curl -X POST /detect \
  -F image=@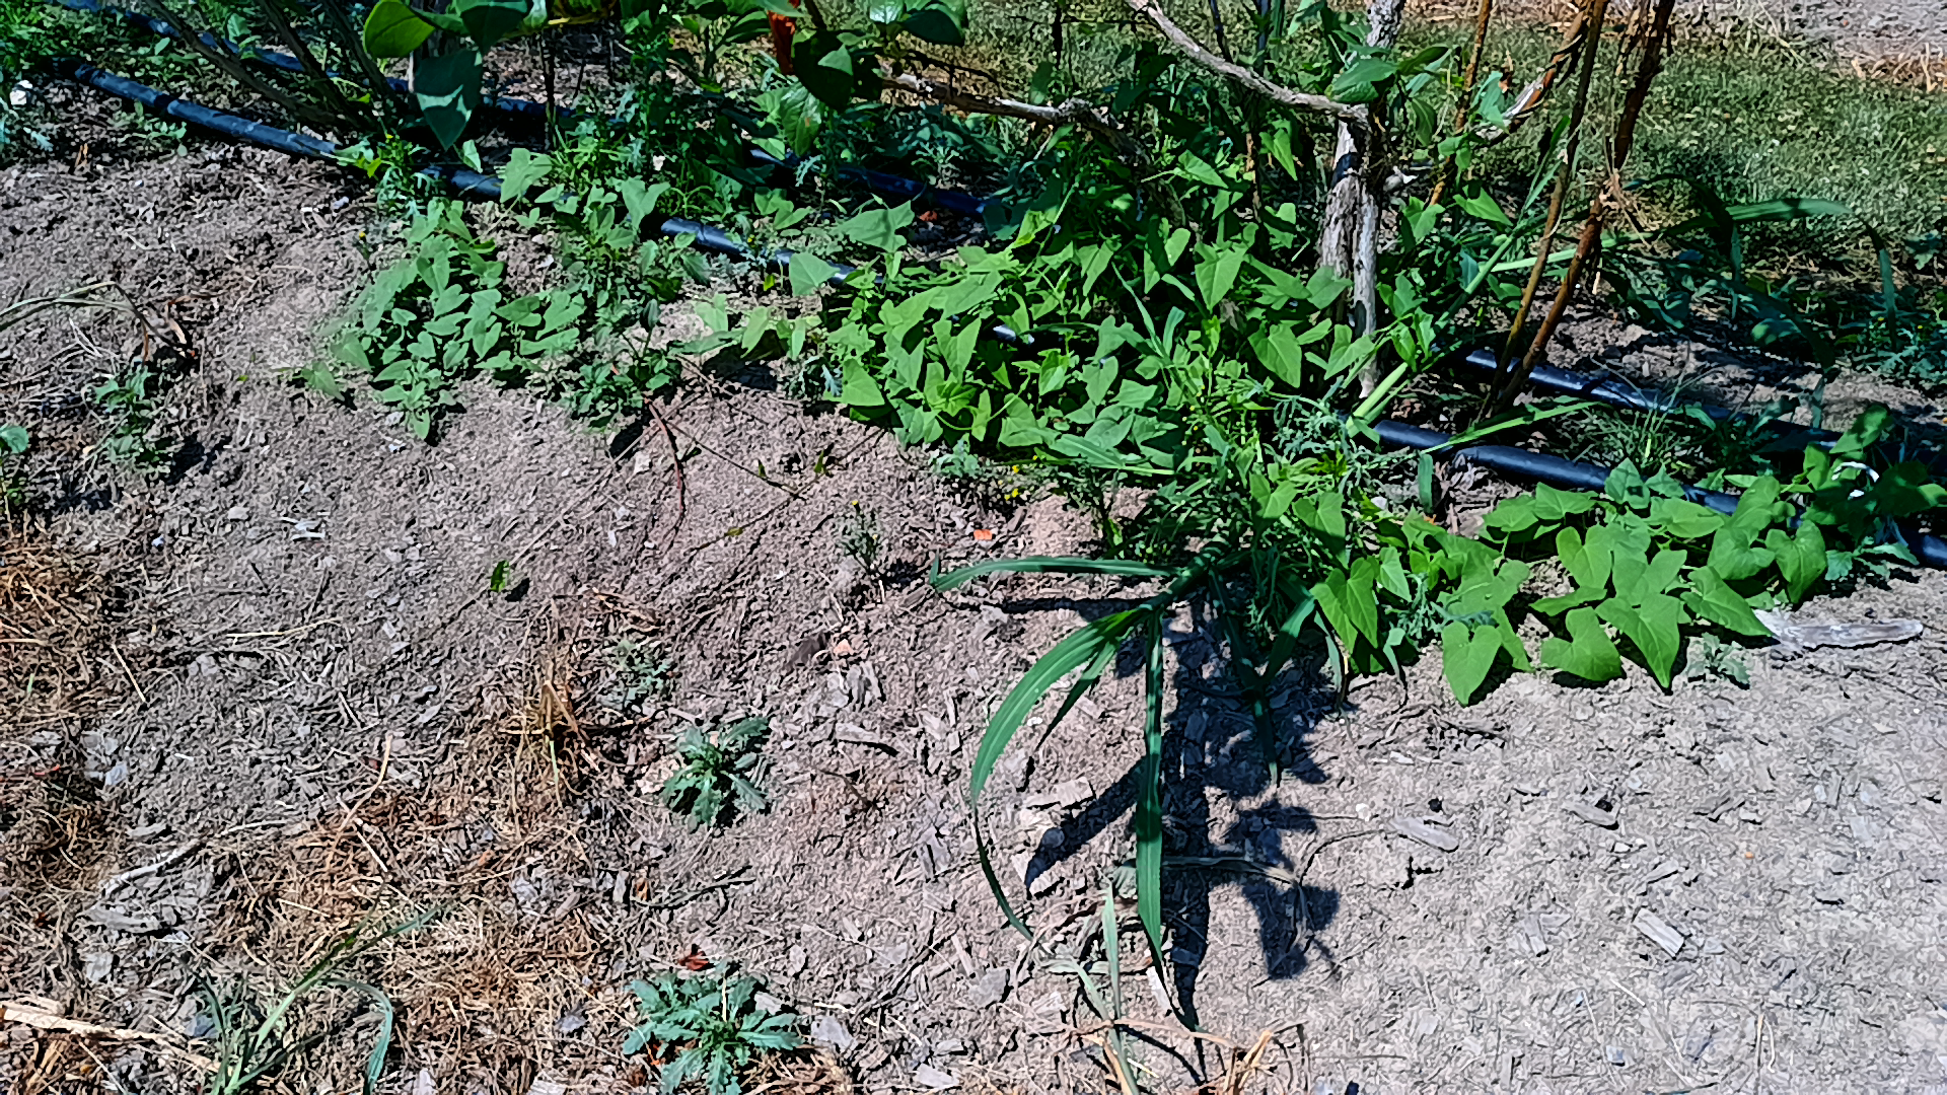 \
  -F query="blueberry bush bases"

[1066,138,1619,569]
[205,25,554,217]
